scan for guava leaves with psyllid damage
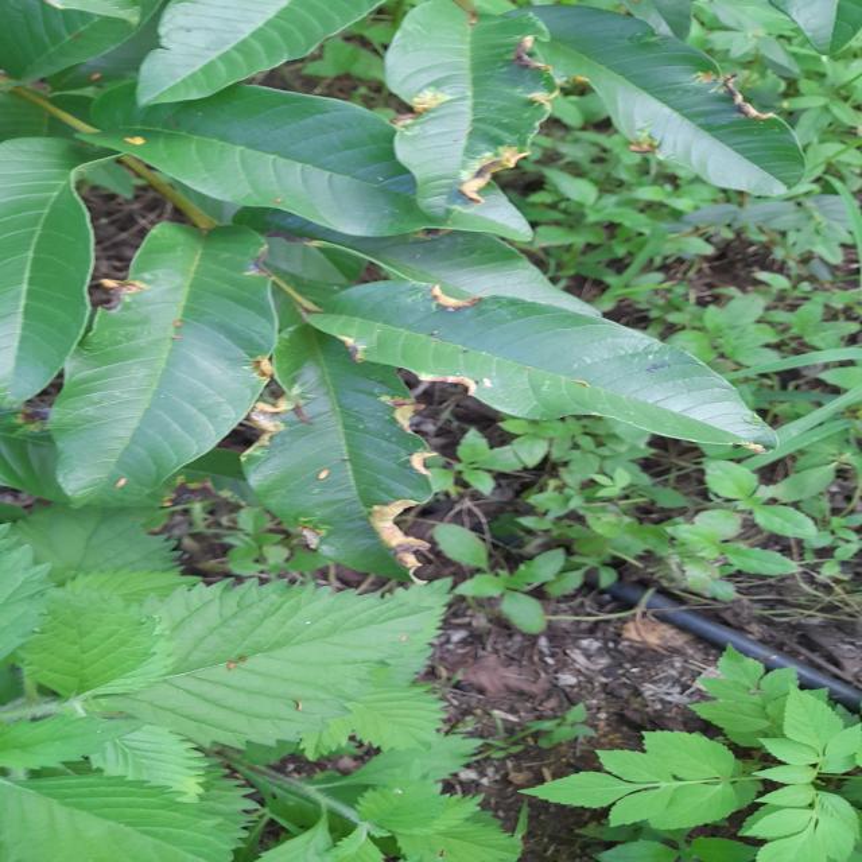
[337,0,572,231]
[284,275,790,459]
